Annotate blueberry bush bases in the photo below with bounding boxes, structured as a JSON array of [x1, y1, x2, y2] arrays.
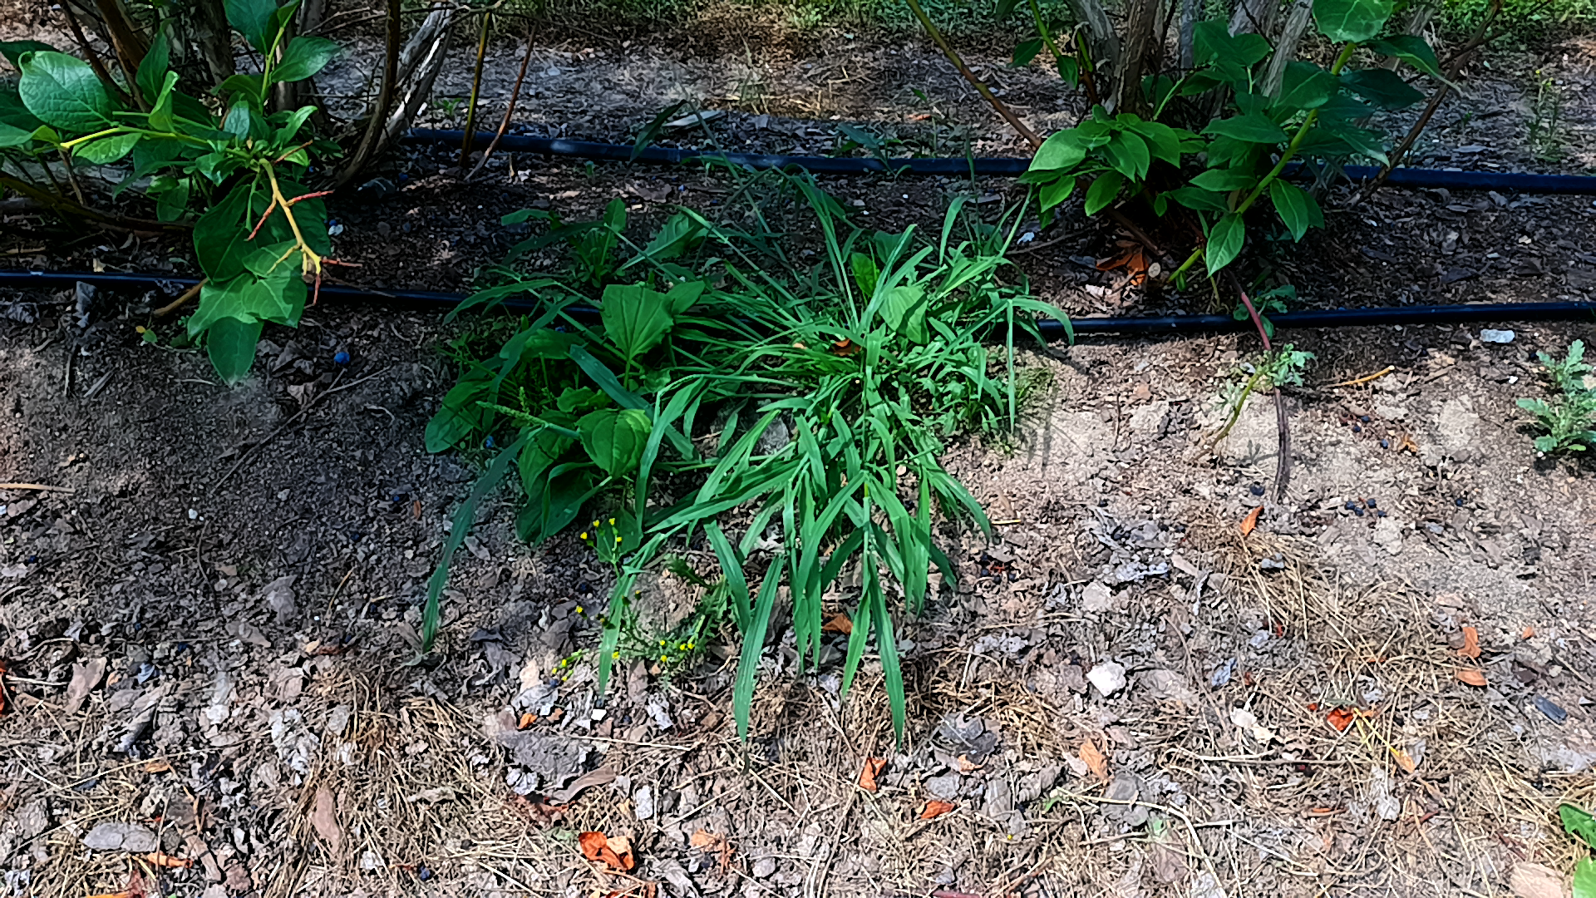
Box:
[[17, 14, 392, 323], [998, 18, 1446, 328]]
